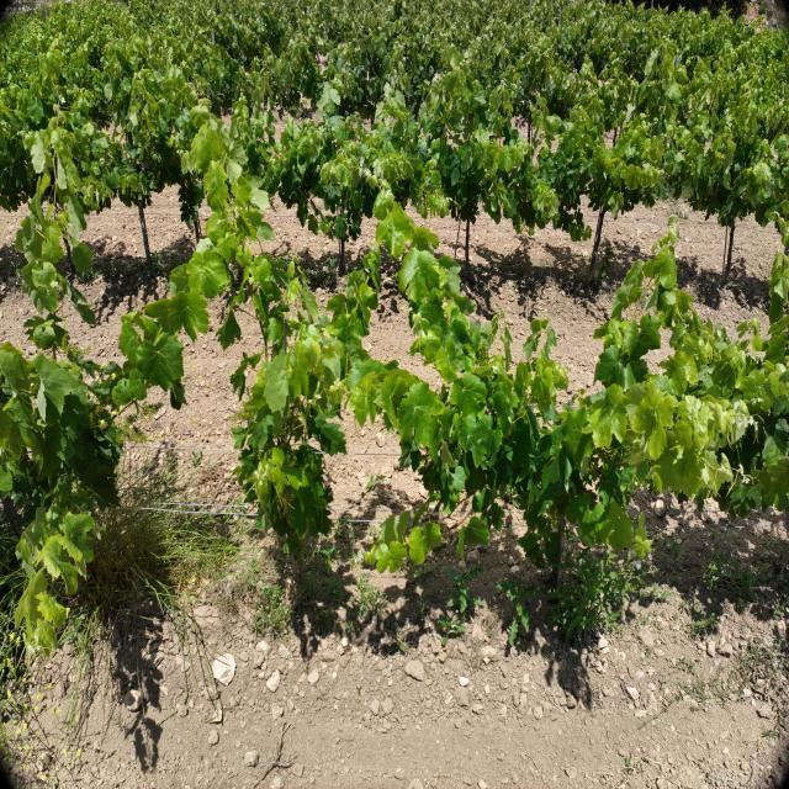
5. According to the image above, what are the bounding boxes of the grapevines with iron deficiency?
[386,262,771,672]
[189,227,394,673]
[0,269,192,674]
